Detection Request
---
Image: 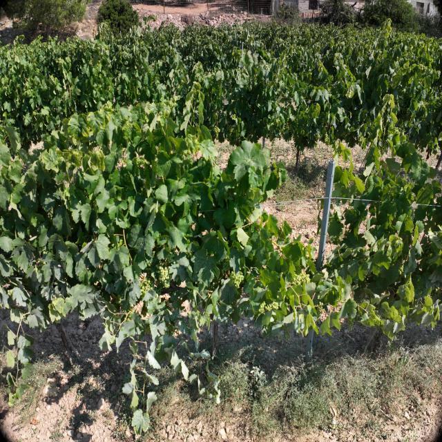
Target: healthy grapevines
[0,111,313,438]
[314,126,442,374]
